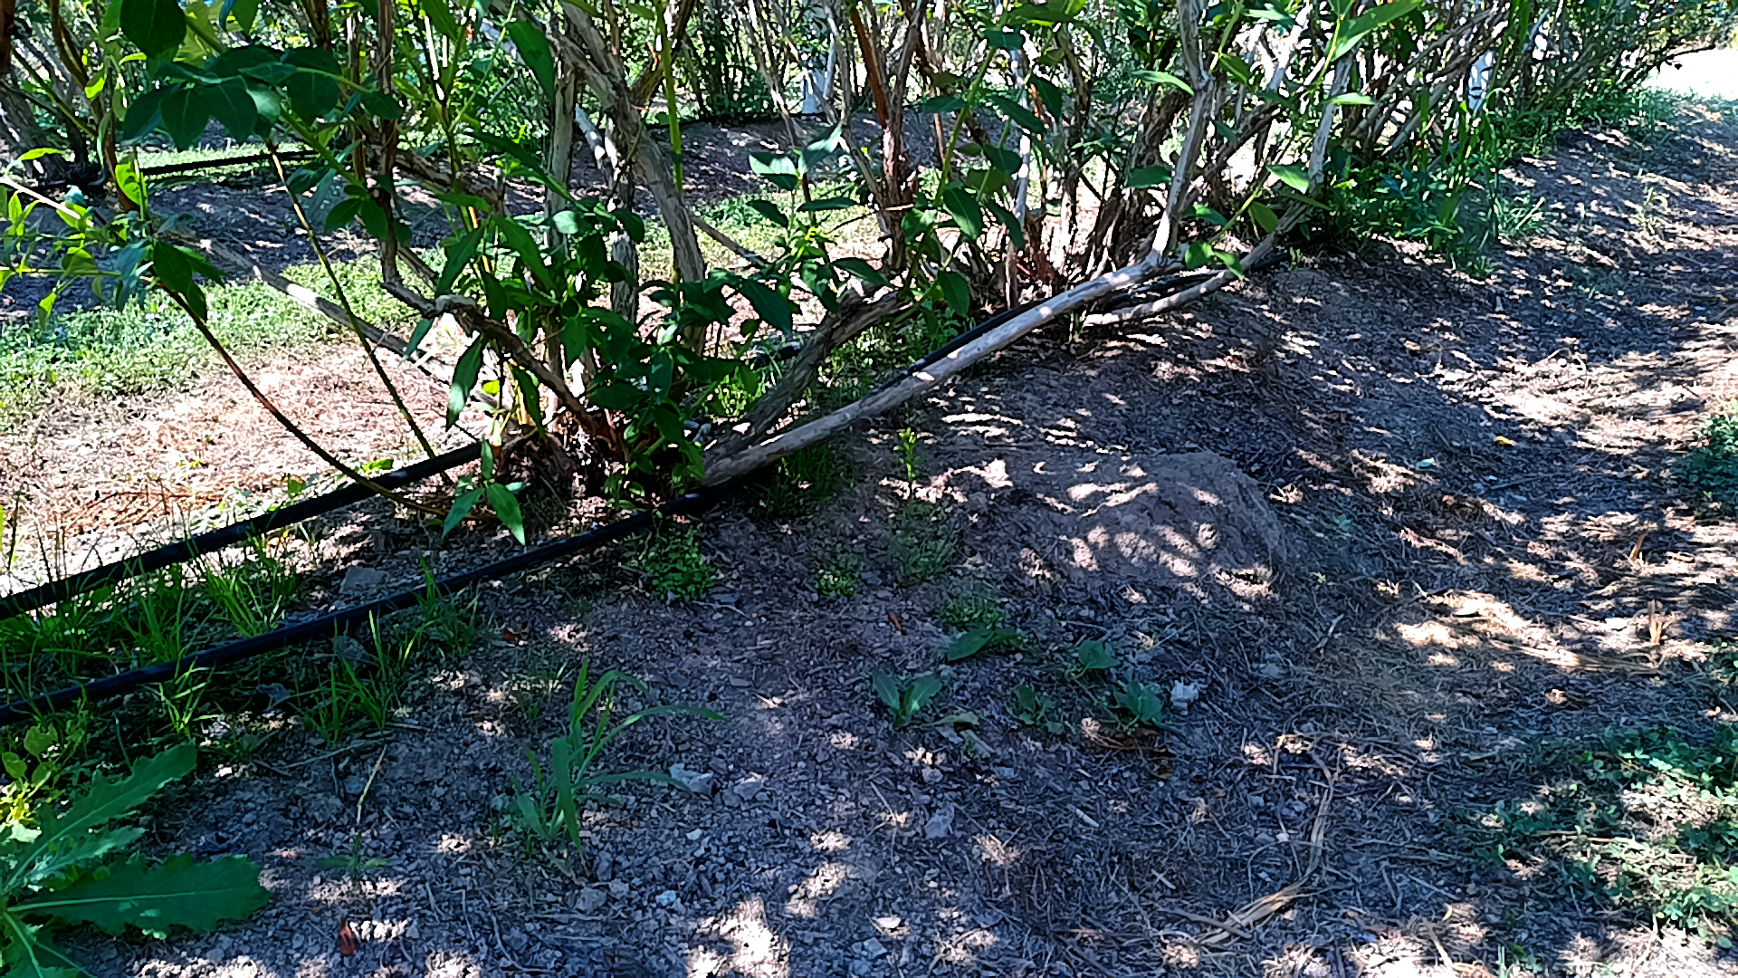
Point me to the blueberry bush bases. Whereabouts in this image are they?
[1198,142,1357,286]
[677,74,778,148]
[863,158,1195,385]
[317,198,860,576]
[4,83,151,226]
